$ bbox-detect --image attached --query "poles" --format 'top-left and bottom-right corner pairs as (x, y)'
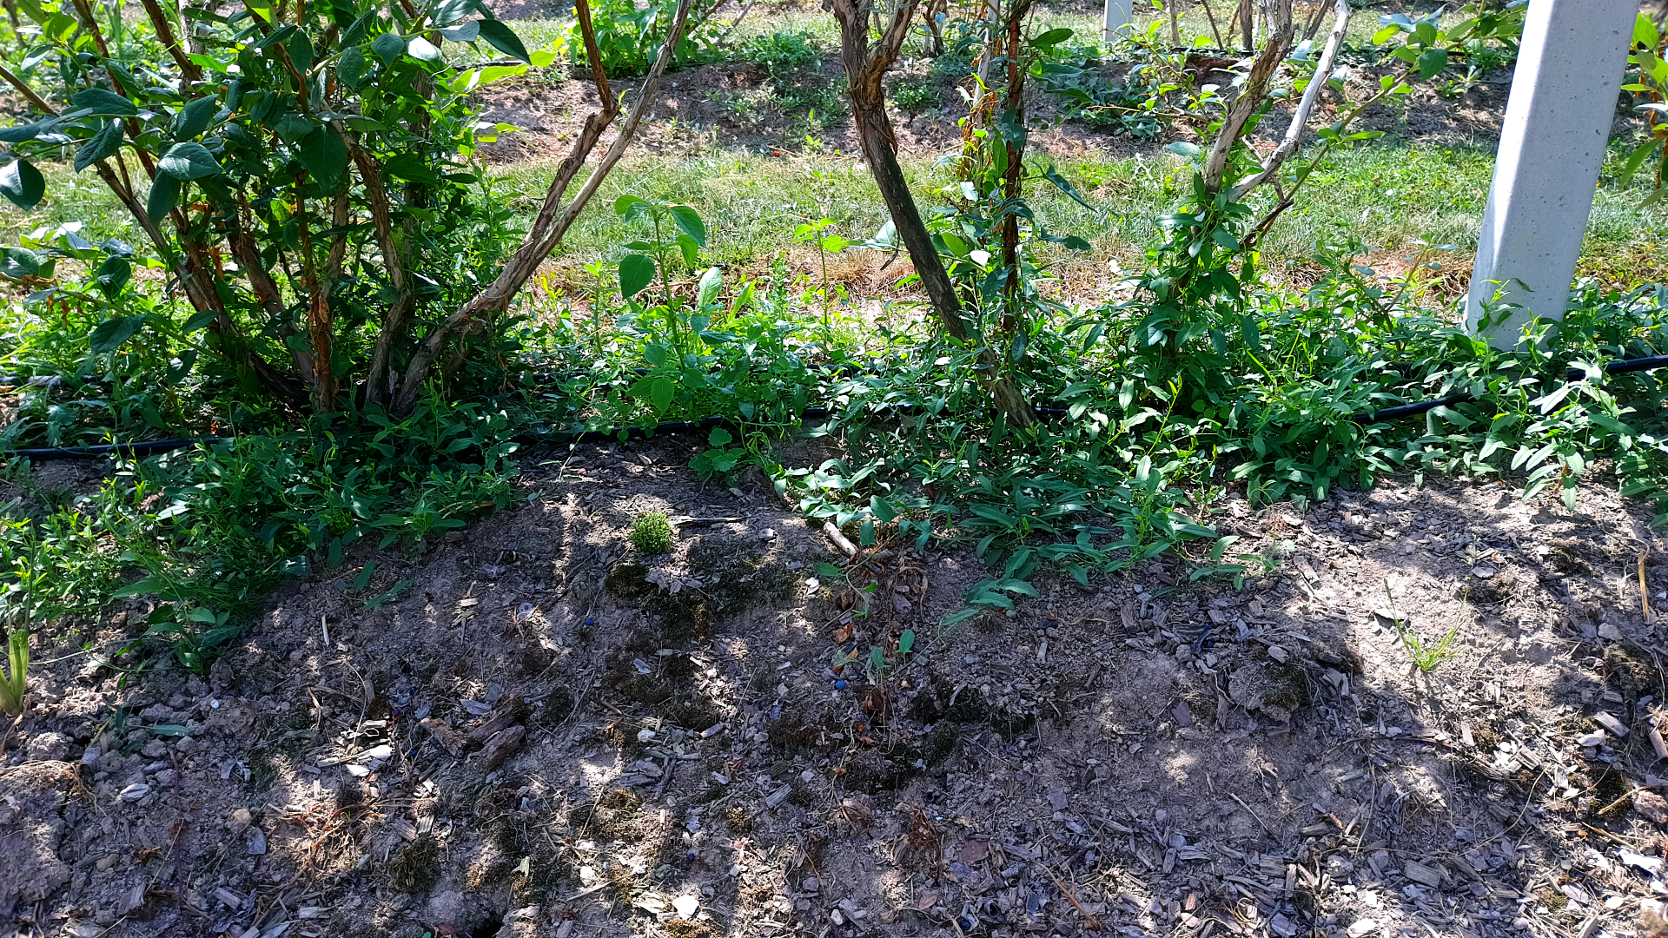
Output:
(1100, 2), (1130, 53)
(1448, 21), (1637, 366)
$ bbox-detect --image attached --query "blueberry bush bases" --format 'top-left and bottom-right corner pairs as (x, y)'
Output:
(130, 217), (581, 525)
(871, 182), (1310, 520)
